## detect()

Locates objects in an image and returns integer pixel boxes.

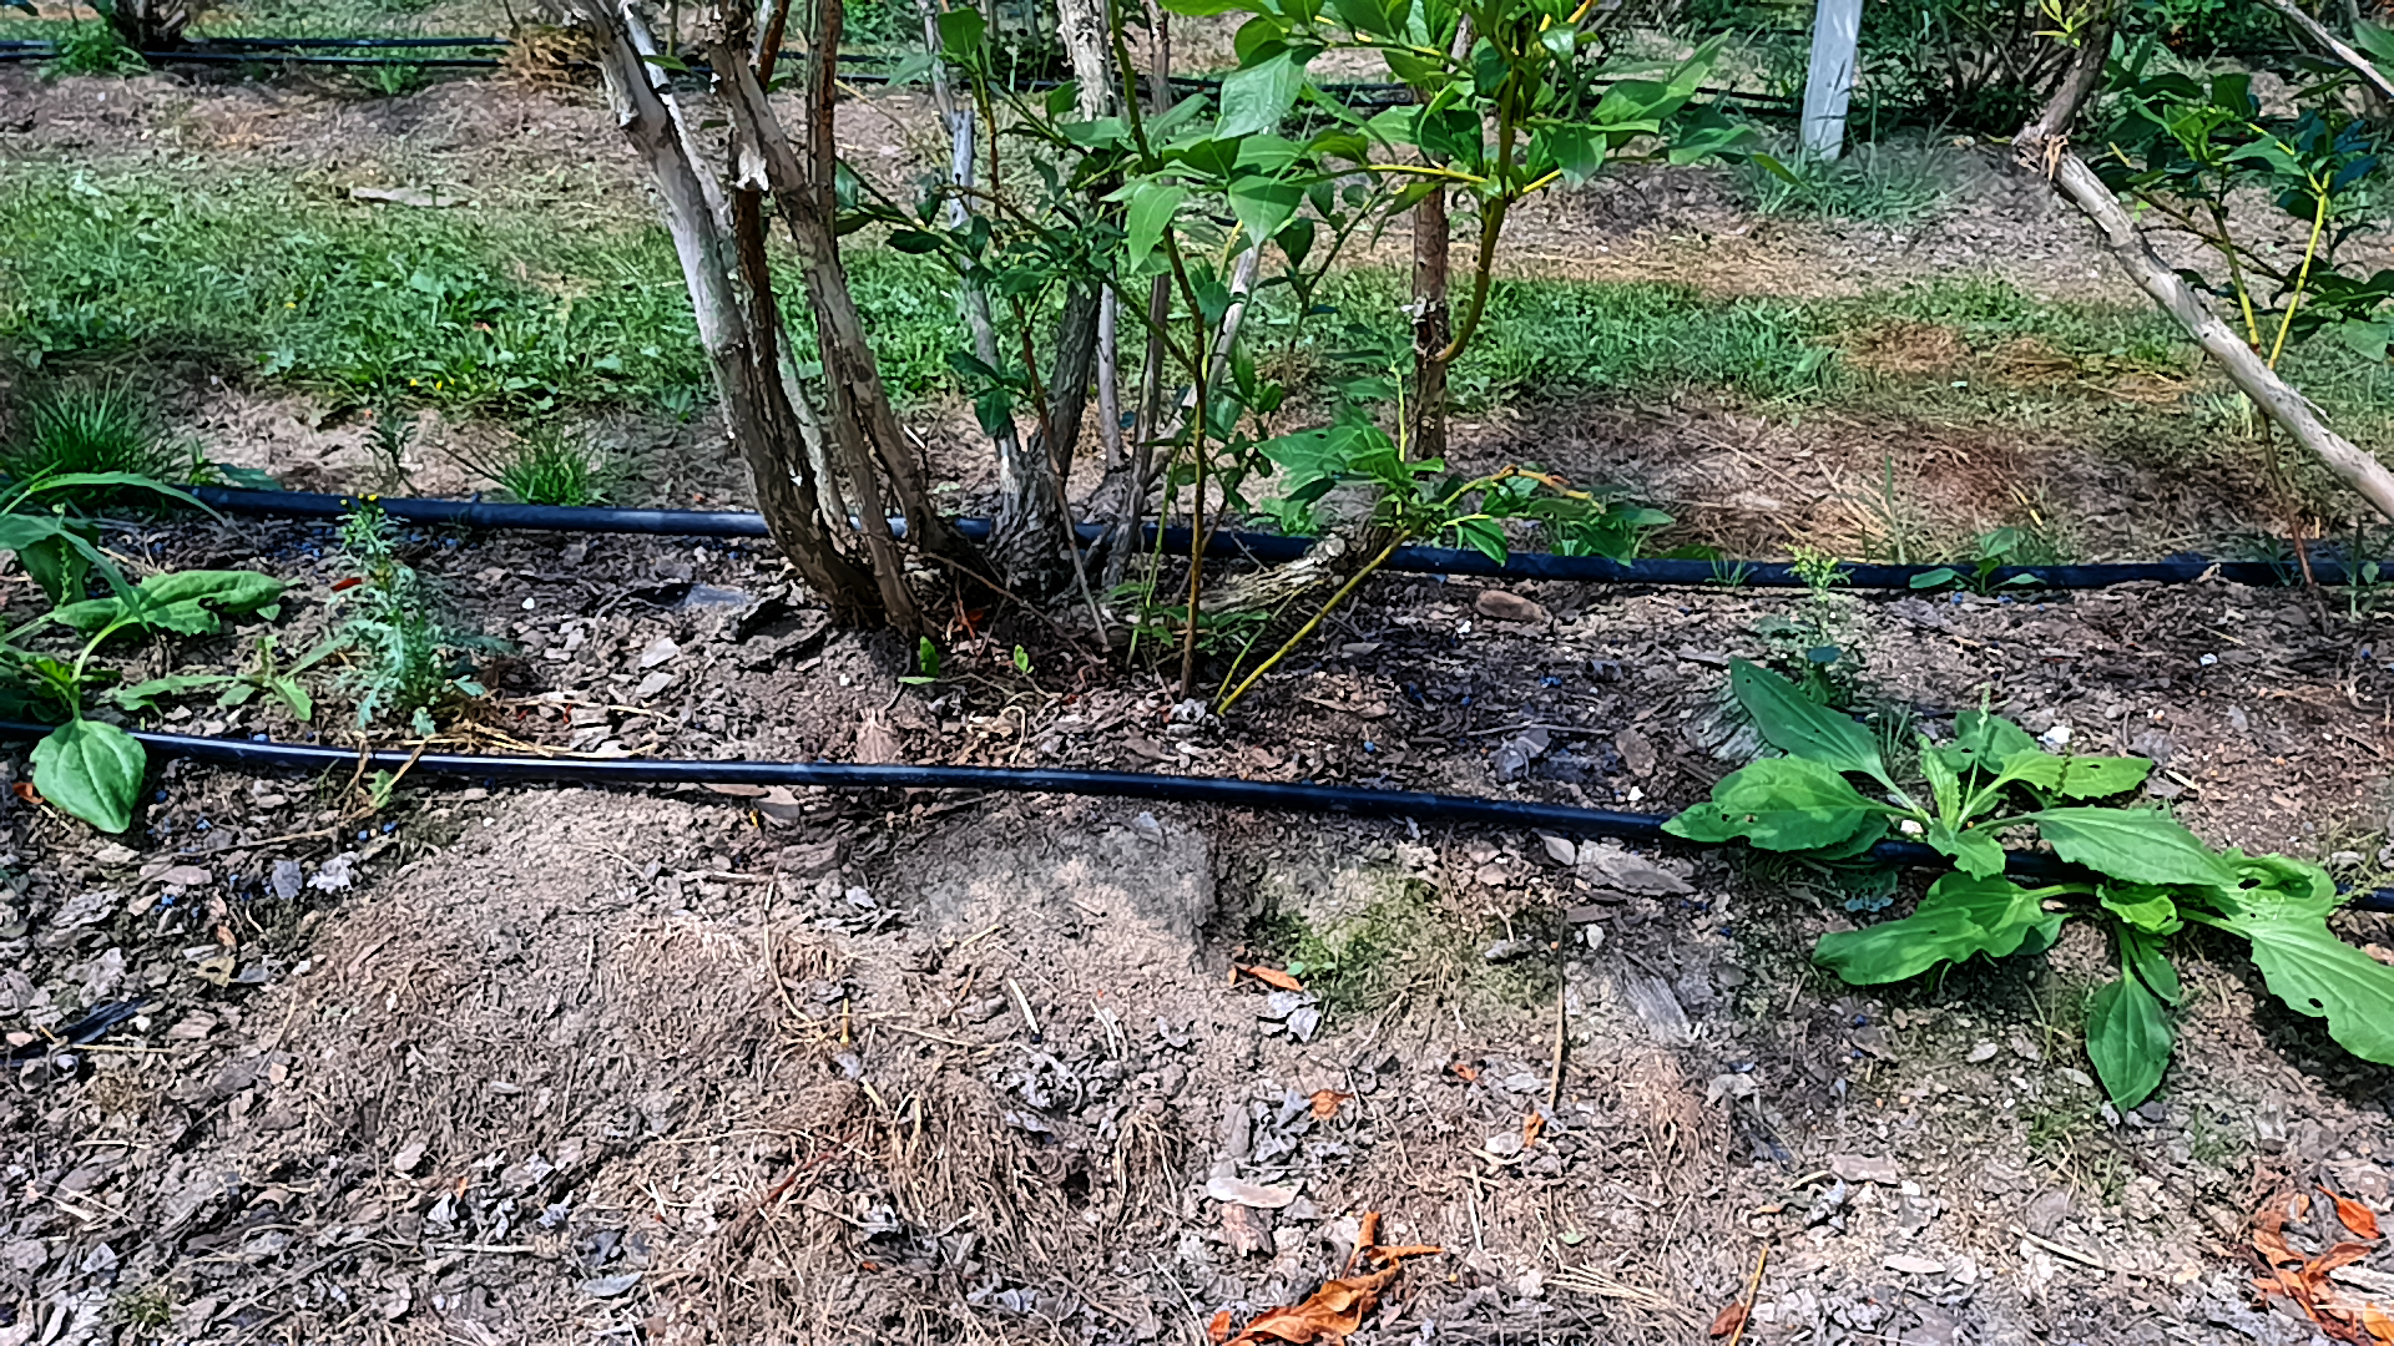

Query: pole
[1794,20,1863,167]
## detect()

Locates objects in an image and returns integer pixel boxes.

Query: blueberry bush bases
[76,0,217,76]
[657,268,1367,784]
[1885,39,2045,152]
